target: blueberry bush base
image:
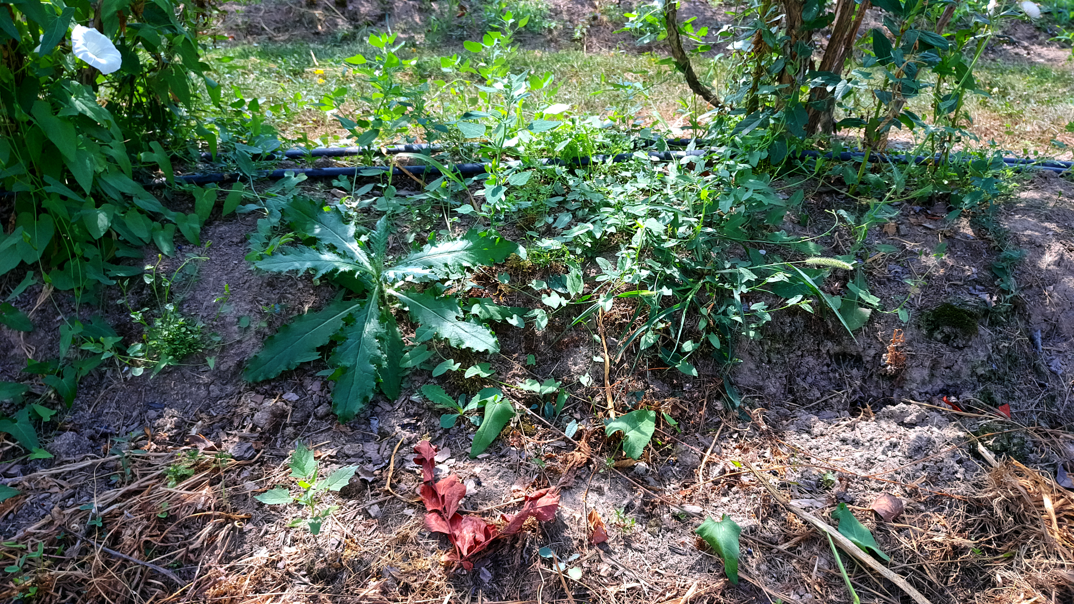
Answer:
[646,41,923,211]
